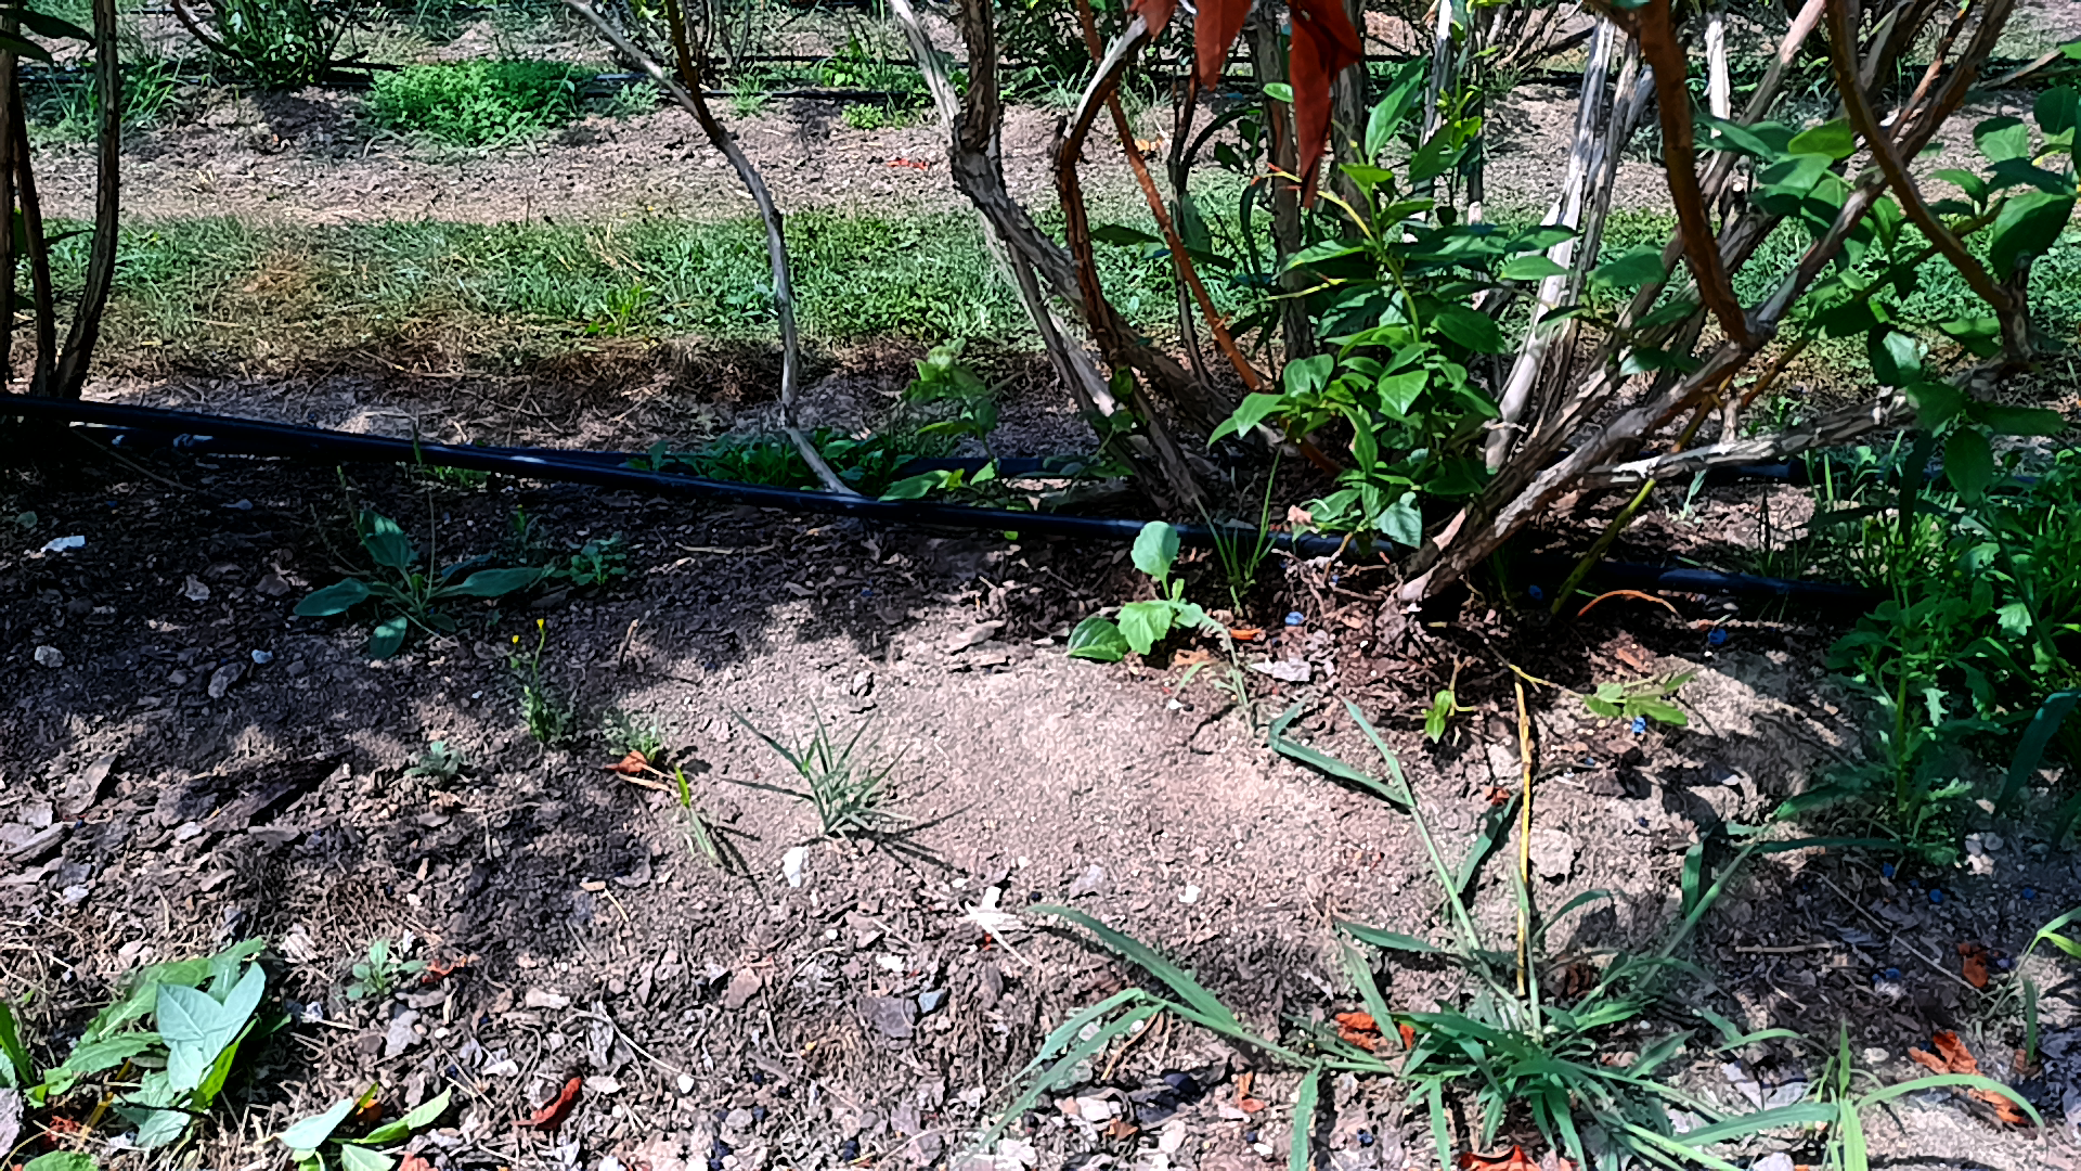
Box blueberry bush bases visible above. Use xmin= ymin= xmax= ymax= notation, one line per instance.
xmin=1078 ymin=191 xmax=1876 ymax=710
xmin=1 ymin=173 xmax=147 ymax=549
xmin=182 ymin=8 xmax=366 ymax=88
